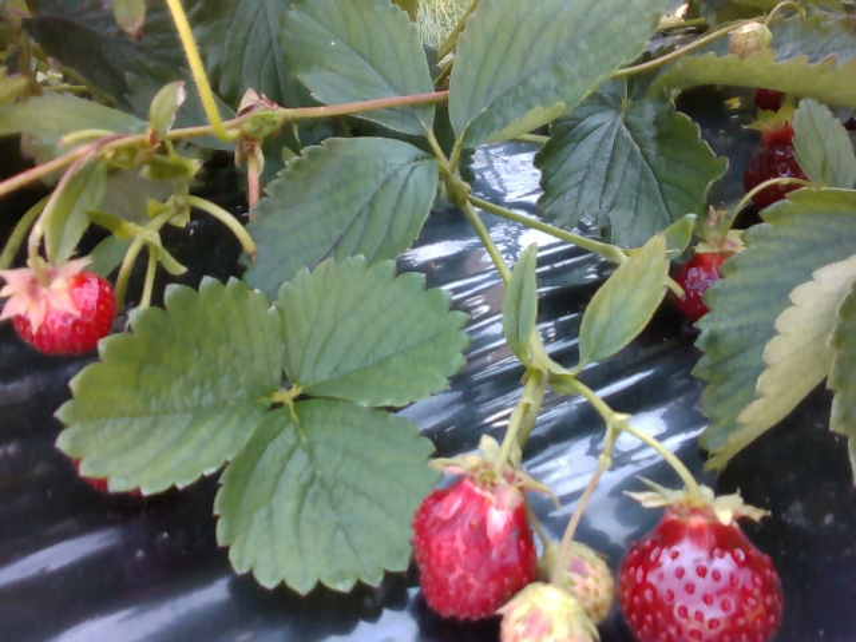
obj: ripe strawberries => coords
[418,479,545,617]
[685,242,754,317]
[0,255,121,358]
[742,113,856,214]
[617,508,788,638]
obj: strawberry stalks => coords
[640,431,716,539]
[479,391,529,508]
[714,182,755,266]
[30,169,73,300]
